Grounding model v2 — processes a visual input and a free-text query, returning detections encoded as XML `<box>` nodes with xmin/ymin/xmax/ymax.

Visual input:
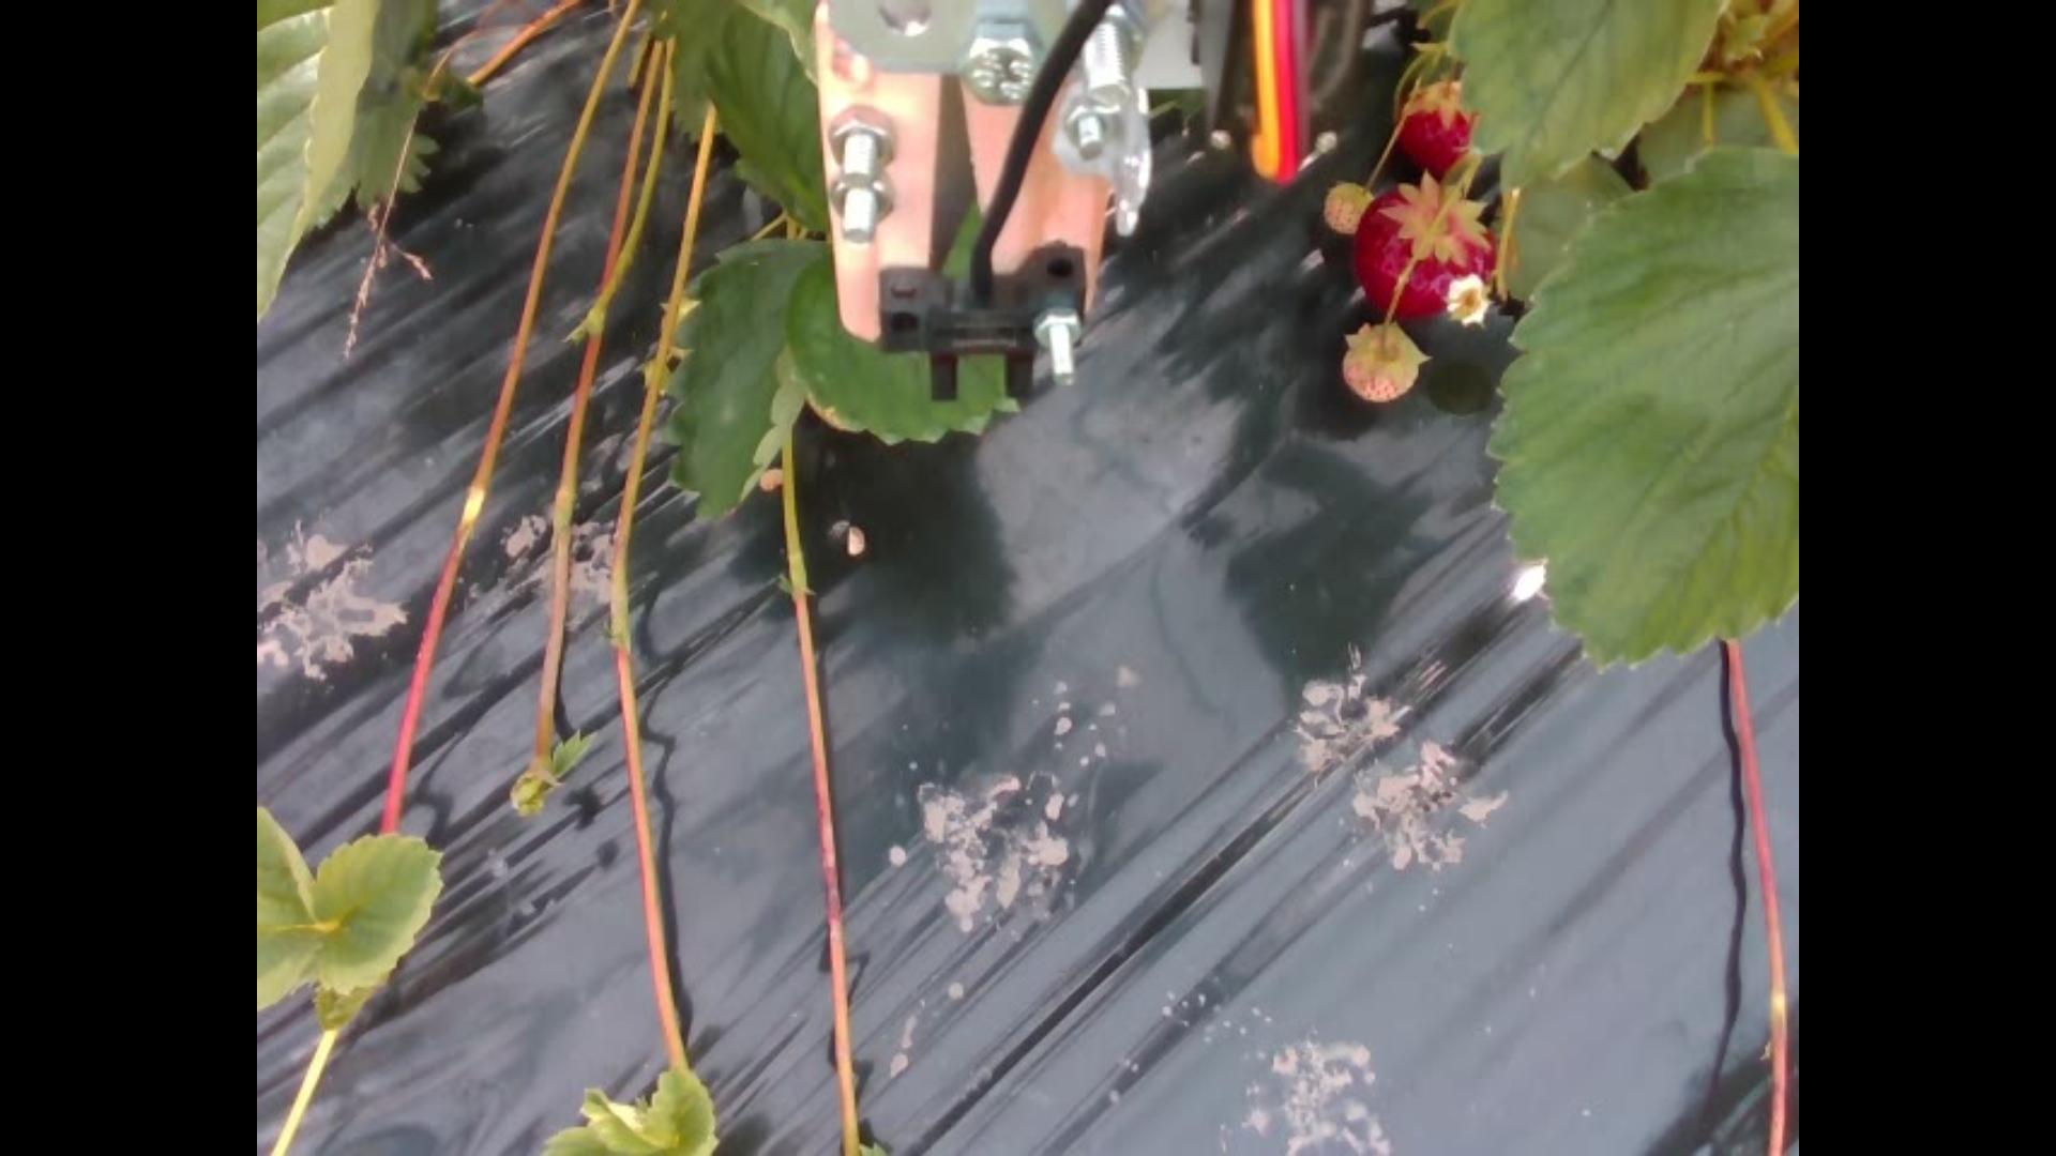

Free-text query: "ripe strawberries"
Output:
<box><xmin>1355</xmin><ymin>170</ymin><xmax>1501</xmax><ymax>326</ymax></box>
<box><xmin>1395</xmin><ymin>72</ymin><xmax>1499</xmax><ymax>176</ymax></box>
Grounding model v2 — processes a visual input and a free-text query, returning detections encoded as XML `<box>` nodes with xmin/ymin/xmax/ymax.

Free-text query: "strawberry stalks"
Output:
<box><xmin>1433</xmin><ymin>51</ymin><xmax>1468</xmax><ymax>109</ymax></box>
<box><xmin>1371</xmin><ymin>260</ymin><xmax>1415</xmax><ymax>370</ymax></box>
<box><xmin>1363</xmin><ymin>146</ymin><xmax>1392</xmax><ymax>201</ymax></box>
<box><xmin>1417</xmin><ymin>136</ymin><xmax>1511</xmax><ymax>243</ymax></box>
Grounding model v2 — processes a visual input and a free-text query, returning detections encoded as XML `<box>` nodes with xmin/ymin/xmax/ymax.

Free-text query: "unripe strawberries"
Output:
<box><xmin>1321</xmin><ymin>171</ymin><xmax>1376</xmax><ymax>235</ymax></box>
<box><xmin>1331</xmin><ymin>310</ymin><xmax>1417</xmax><ymax>414</ymax></box>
